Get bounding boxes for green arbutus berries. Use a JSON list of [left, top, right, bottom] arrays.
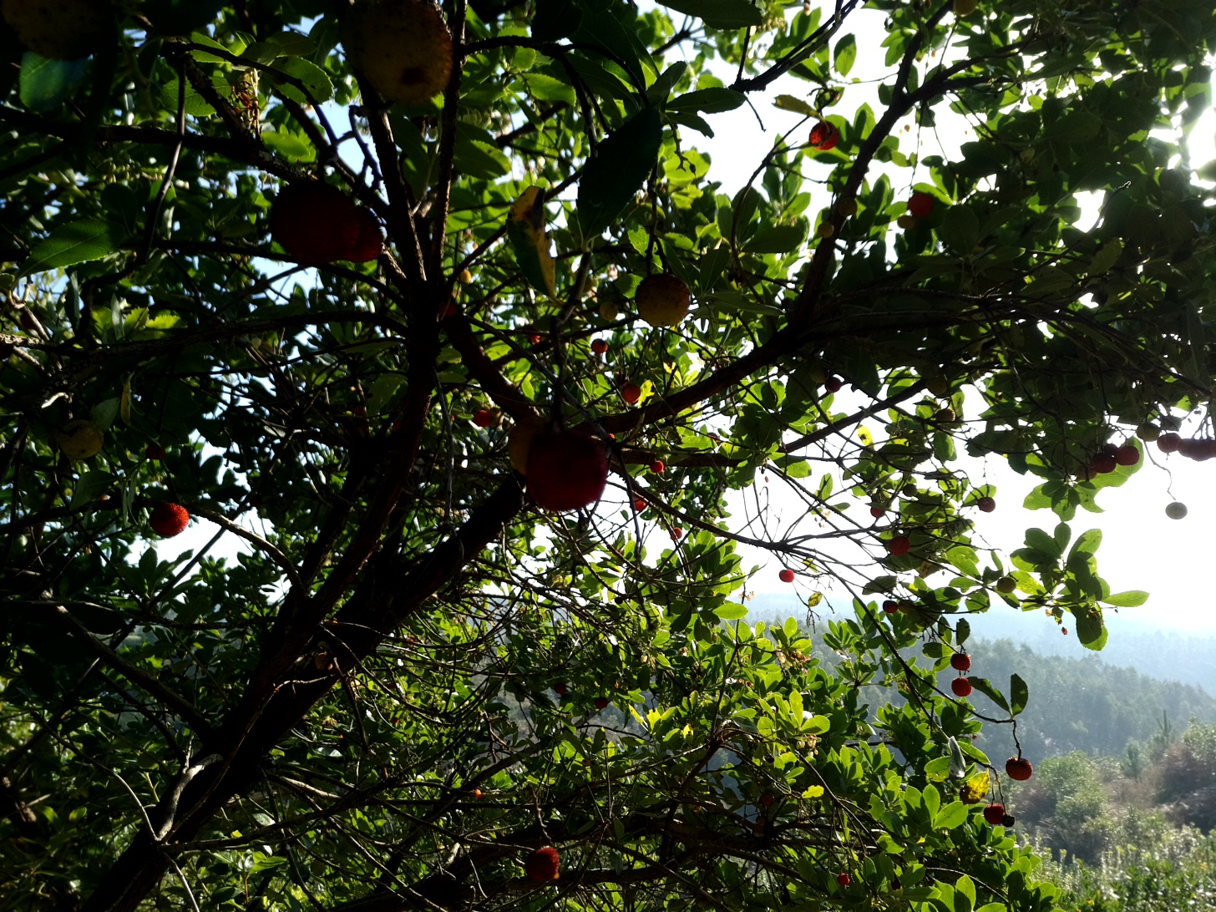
[[818, 222, 834, 238], [898, 599, 913, 612], [903, 483, 917, 497], [840, 198, 858, 216], [898, 215, 914, 230], [1137, 422, 1160, 443]]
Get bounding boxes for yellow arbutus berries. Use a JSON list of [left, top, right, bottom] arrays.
[[58, 420, 105, 461], [634, 273, 690, 327], [357, 0, 458, 107], [599, 301, 618, 320]]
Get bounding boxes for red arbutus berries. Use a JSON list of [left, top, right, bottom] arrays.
[[263, 176, 358, 263], [997, 576, 1016, 593], [1157, 433, 1180, 454], [1093, 453, 1116, 474], [1115, 446, 1139, 466], [888, 536, 910, 556], [838, 873, 850, 885], [779, 569, 794, 583], [150, 501, 190, 537], [883, 601, 898, 614], [622, 383, 642, 403], [630, 496, 647, 511], [474, 409, 491, 427], [651, 461, 664, 473], [523, 845, 563, 881], [978, 496, 996, 513], [952, 677, 972, 697], [950, 653, 971, 671], [809, 120, 839, 151], [870, 505, 884, 517], [984, 804, 1005, 825], [670, 527, 683, 539], [908, 192, 933, 215], [527, 428, 608, 510], [506, 417, 557, 478], [591, 338, 609, 355], [1006, 756, 1032, 781]]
